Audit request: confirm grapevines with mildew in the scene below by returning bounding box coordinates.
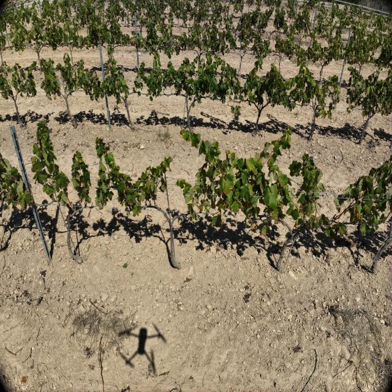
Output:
[94,138,235,273]
[0,117,107,270]
[343,146,392,280]
[228,126,344,277]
